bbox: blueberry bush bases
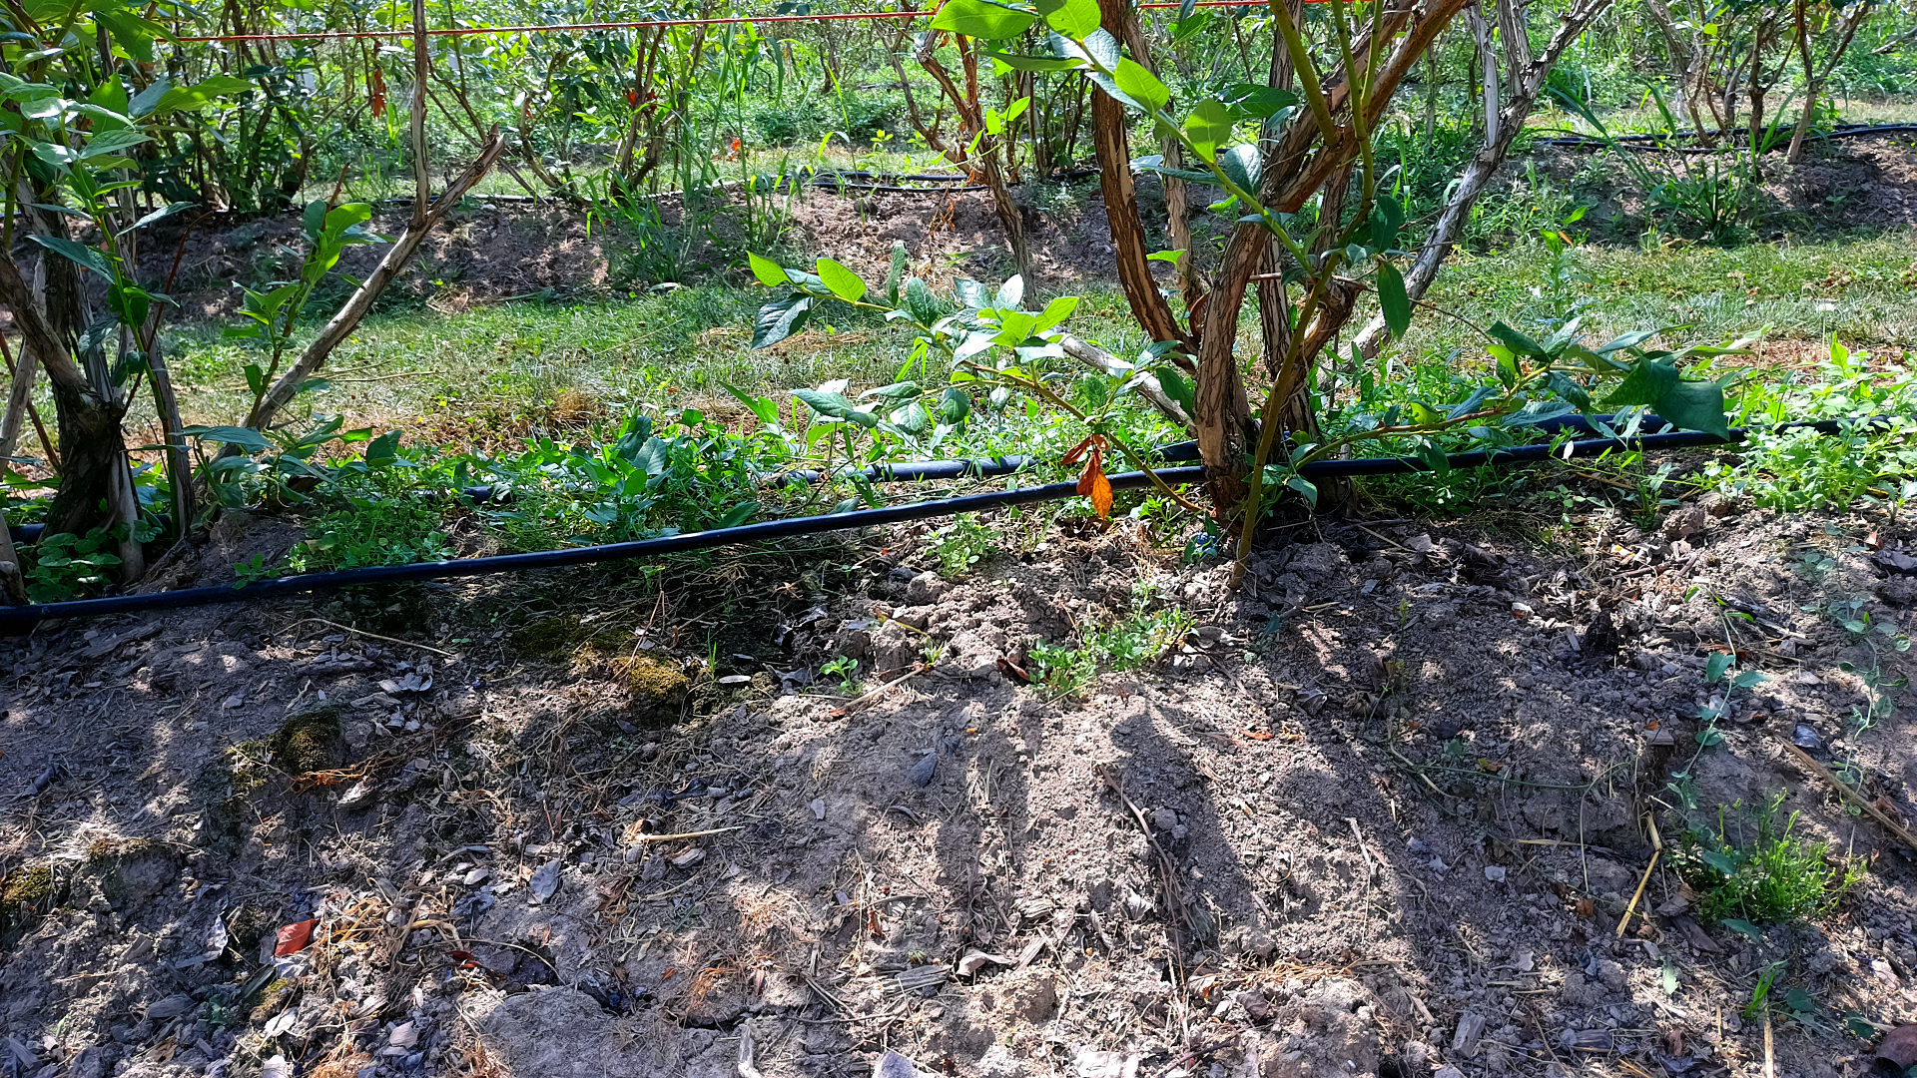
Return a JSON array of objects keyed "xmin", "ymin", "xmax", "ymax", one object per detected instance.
[
  {"xmin": 5, "ymin": 350, "xmax": 347, "ymax": 687},
  {"xmin": 1640, "ymin": 66, "xmax": 1841, "ymax": 203},
  {"xmin": 1073, "ymin": 262, "xmax": 1454, "ymax": 568},
  {"xmin": 924, "ymin": 120, "xmax": 1085, "ymax": 233},
  {"xmin": 173, "ymin": 133, "xmax": 311, "ymax": 246},
  {"xmin": 502, "ymin": 136, "xmax": 696, "ymax": 269}
]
